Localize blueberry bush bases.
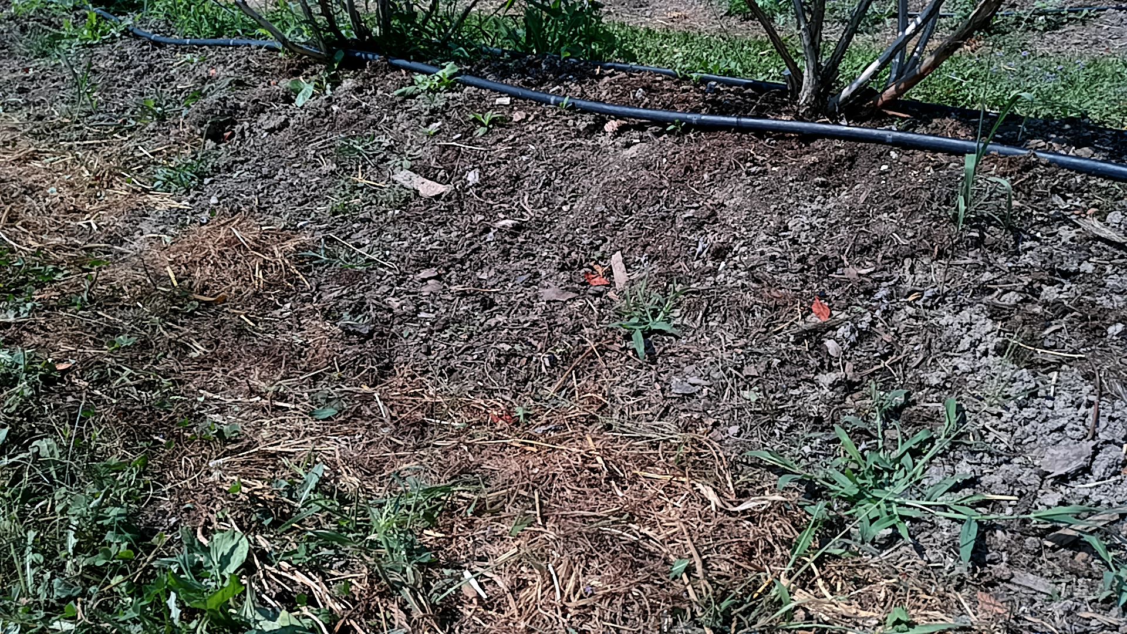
[744,13,970,151]
[288,4,483,96]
